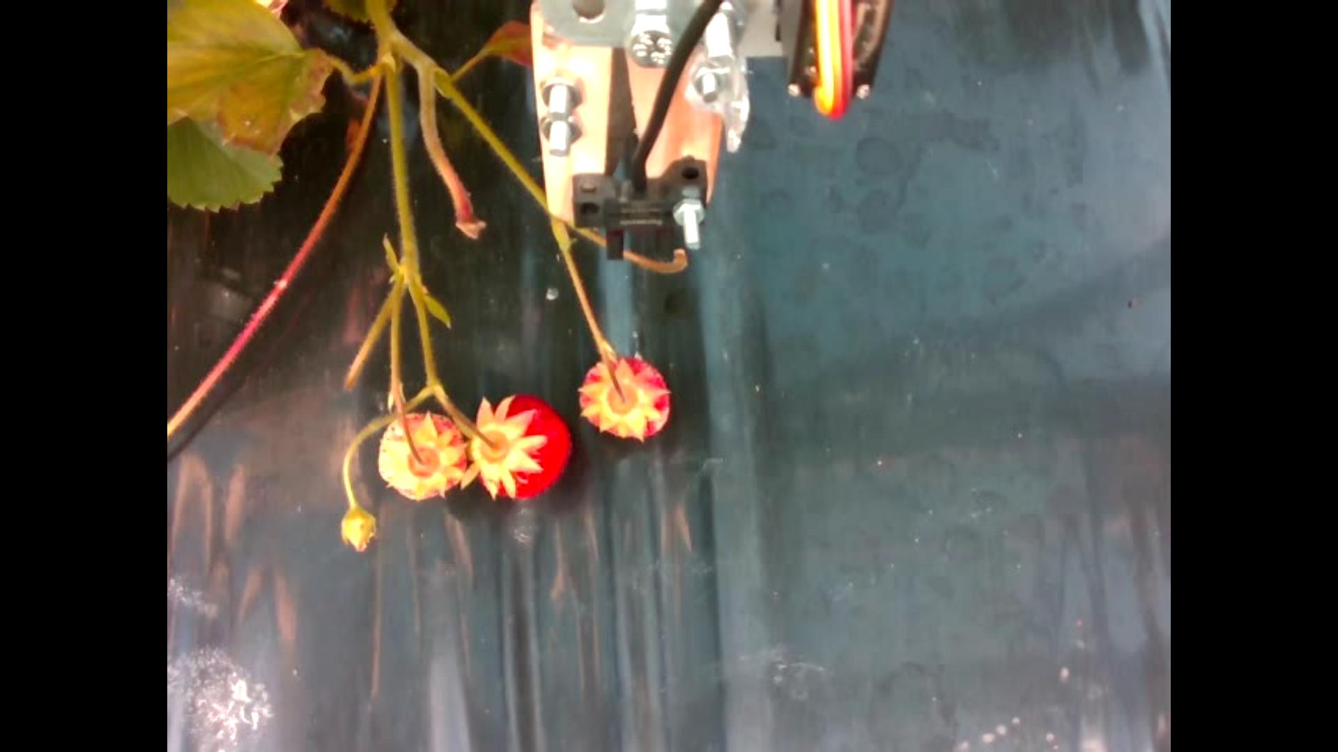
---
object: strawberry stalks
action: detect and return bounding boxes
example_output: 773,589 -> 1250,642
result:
453,397 -> 499,452
388,401 -> 426,462
580,313 -> 629,393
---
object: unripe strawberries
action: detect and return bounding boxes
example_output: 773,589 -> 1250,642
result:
575,357 -> 674,440
382,411 -> 468,502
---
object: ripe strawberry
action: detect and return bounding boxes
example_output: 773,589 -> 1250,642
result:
467,390 -> 569,508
